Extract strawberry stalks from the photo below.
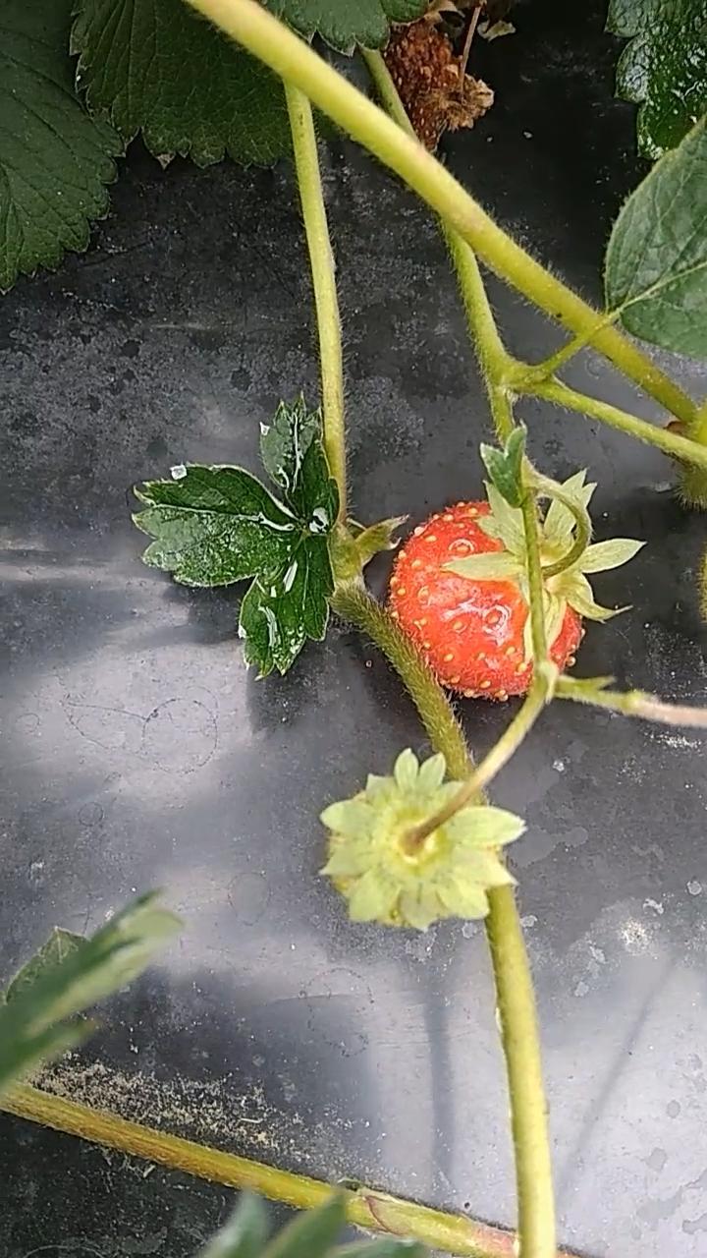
[376,716,517,842]
[493,488,590,616]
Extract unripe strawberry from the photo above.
[320,766,504,933]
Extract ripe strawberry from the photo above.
[385,487,591,712]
